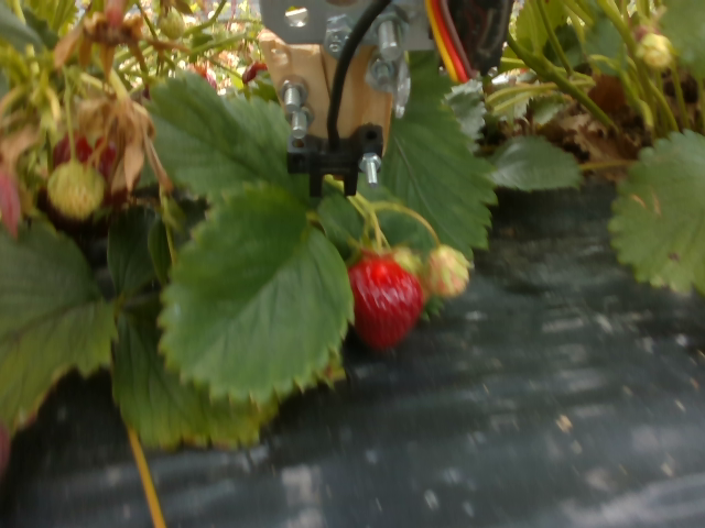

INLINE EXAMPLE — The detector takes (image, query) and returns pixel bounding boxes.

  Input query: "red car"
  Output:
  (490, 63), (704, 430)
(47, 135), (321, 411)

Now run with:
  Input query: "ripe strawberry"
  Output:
(346, 254), (418, 352)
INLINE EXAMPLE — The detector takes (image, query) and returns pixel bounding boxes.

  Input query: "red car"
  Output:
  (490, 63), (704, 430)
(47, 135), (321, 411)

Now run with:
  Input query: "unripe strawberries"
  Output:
(429, 250), (469, 300)
(52, 159), (102, 221)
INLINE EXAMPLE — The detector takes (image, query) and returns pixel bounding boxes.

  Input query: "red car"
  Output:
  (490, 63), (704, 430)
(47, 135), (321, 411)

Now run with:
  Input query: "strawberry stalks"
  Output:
(348, 182), (391, 280)
(59, 73), (84, 179)
(369, 199), (453, 260)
